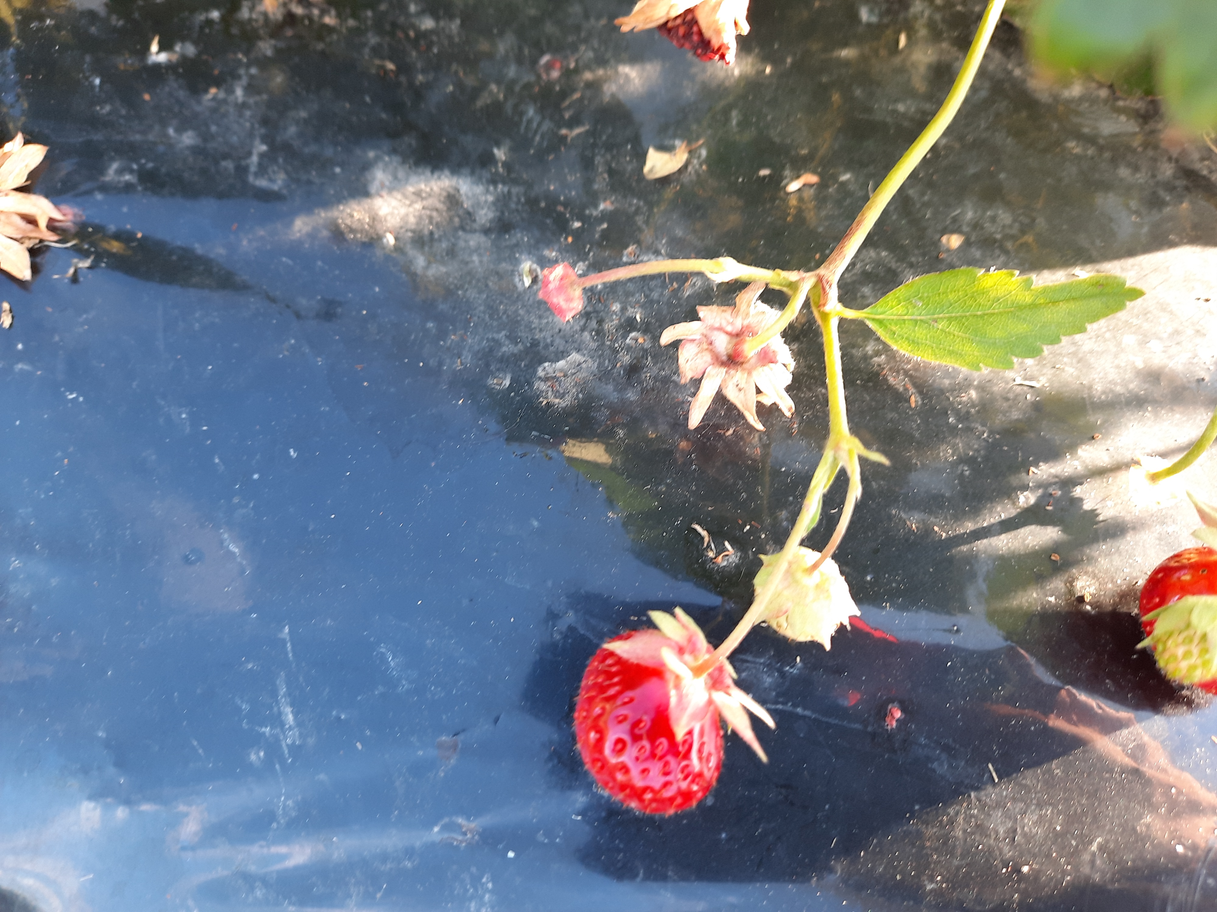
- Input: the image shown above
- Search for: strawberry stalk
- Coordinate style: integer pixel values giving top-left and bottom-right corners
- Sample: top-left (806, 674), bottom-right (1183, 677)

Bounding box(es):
top-left (654, 460), bottom-right (834, 707)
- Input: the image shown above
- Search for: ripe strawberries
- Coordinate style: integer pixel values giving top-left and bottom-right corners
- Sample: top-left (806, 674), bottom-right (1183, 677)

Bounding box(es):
top-left (1125, 543), bottom-right (1217, 694)
top-left (554, 615), bottom-right (728, 812)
